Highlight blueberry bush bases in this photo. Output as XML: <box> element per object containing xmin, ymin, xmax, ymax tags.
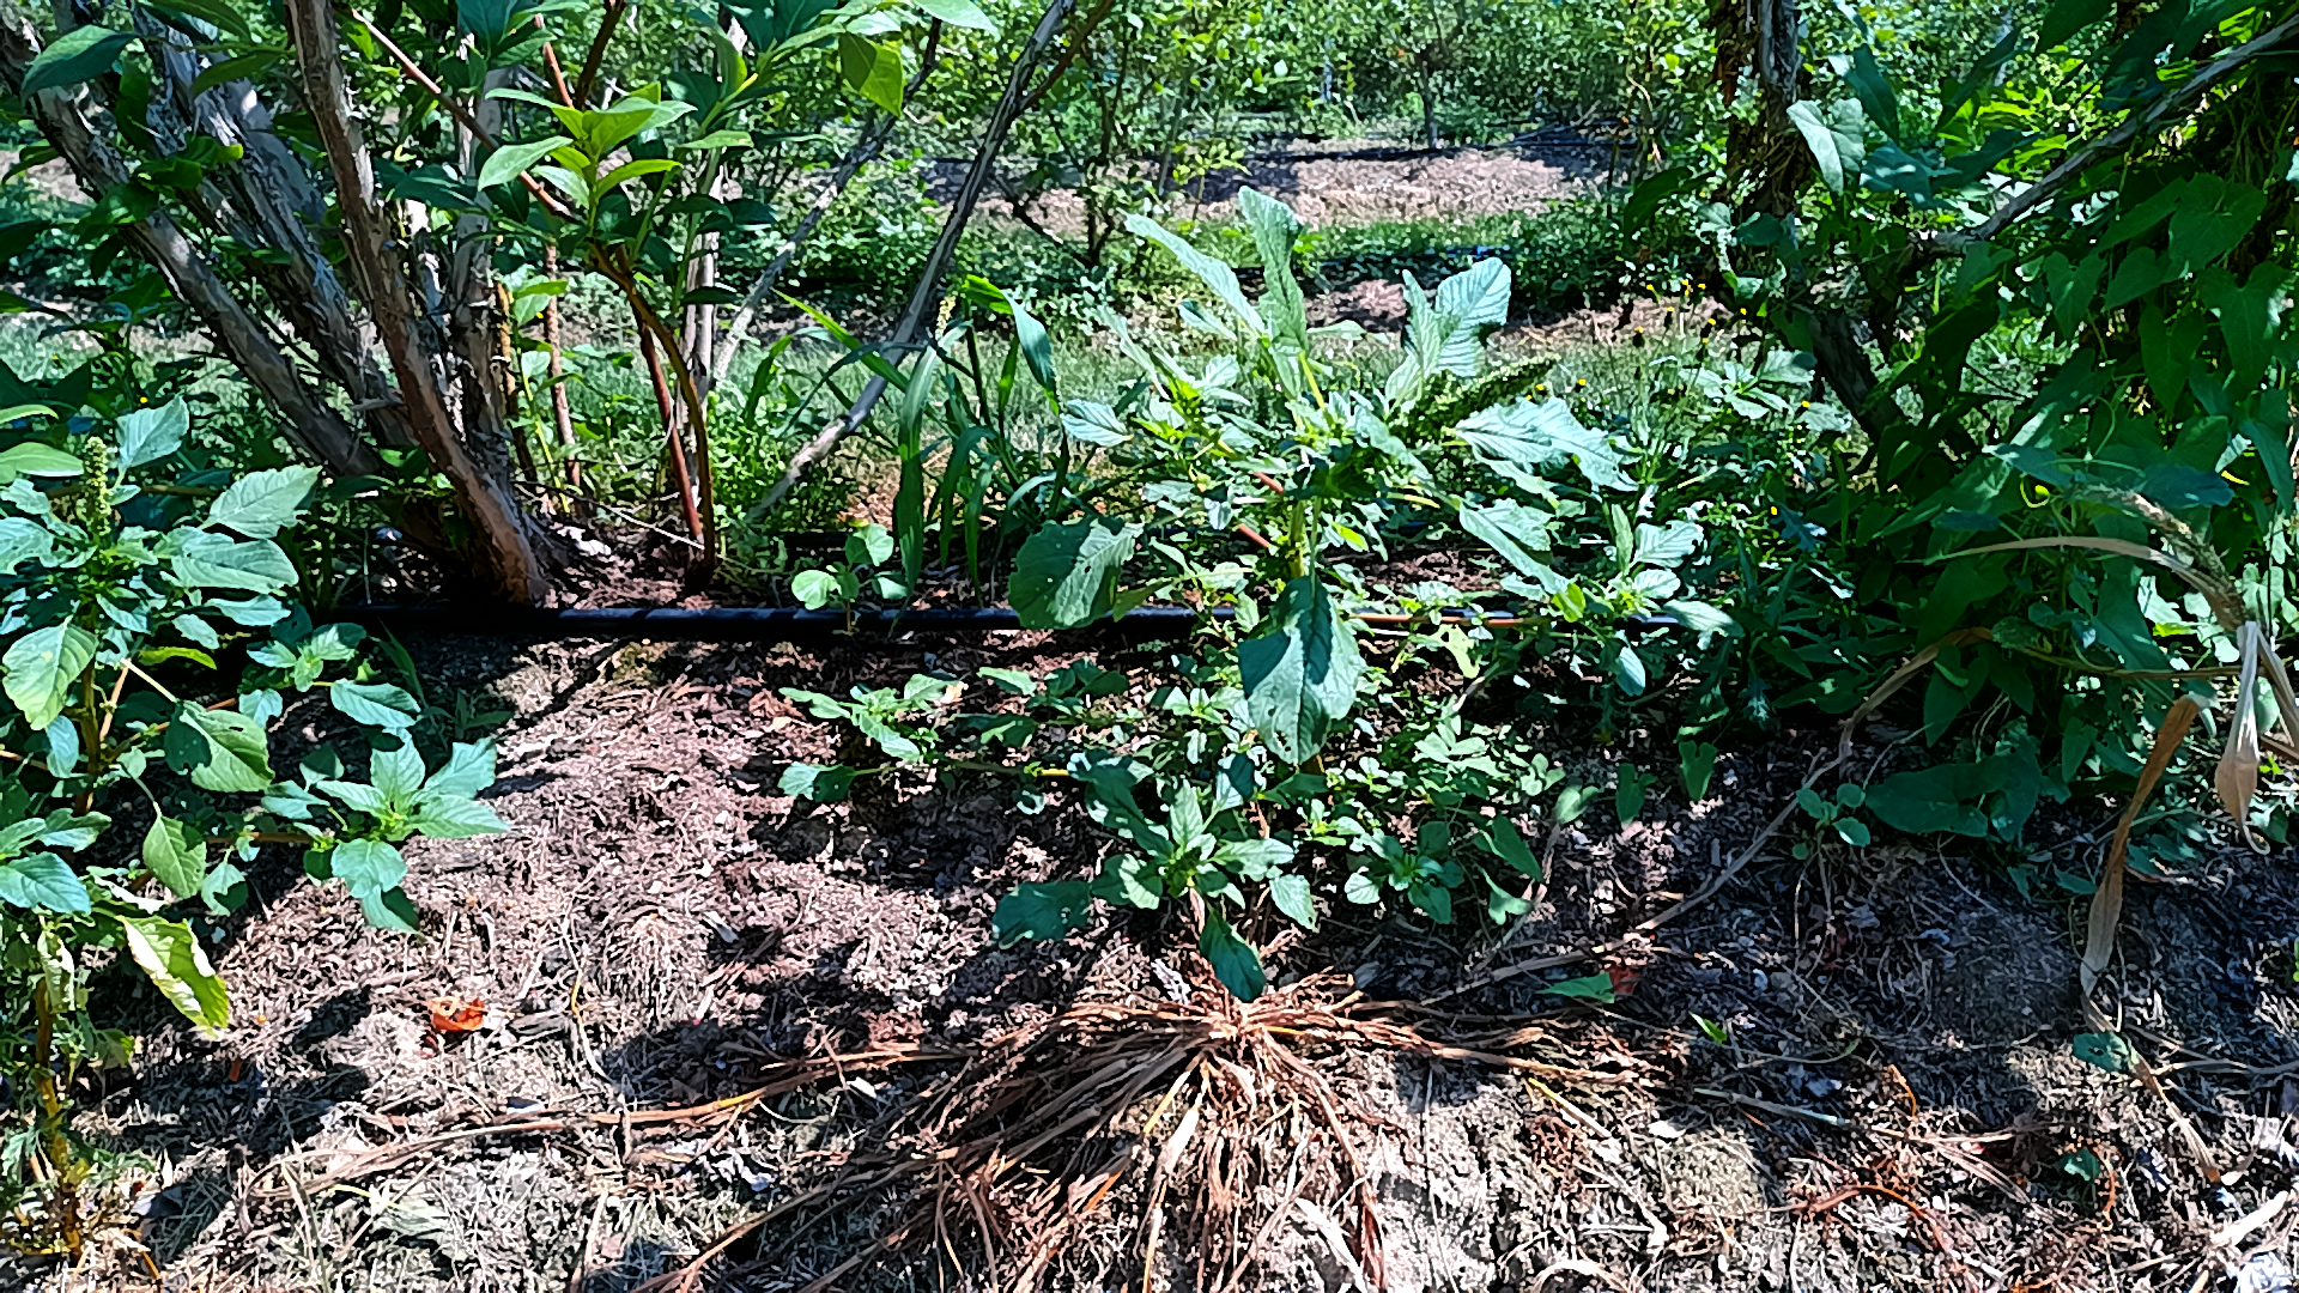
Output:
<box><xmin>1661</xmin><ymin>240</ymin><xmax>2275</xmax><ymax>752</ymax></box>
<box><xmin>202</xmin><ymin>271</ymin><xmax>784</xmax><ymax>688</ymax></box>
